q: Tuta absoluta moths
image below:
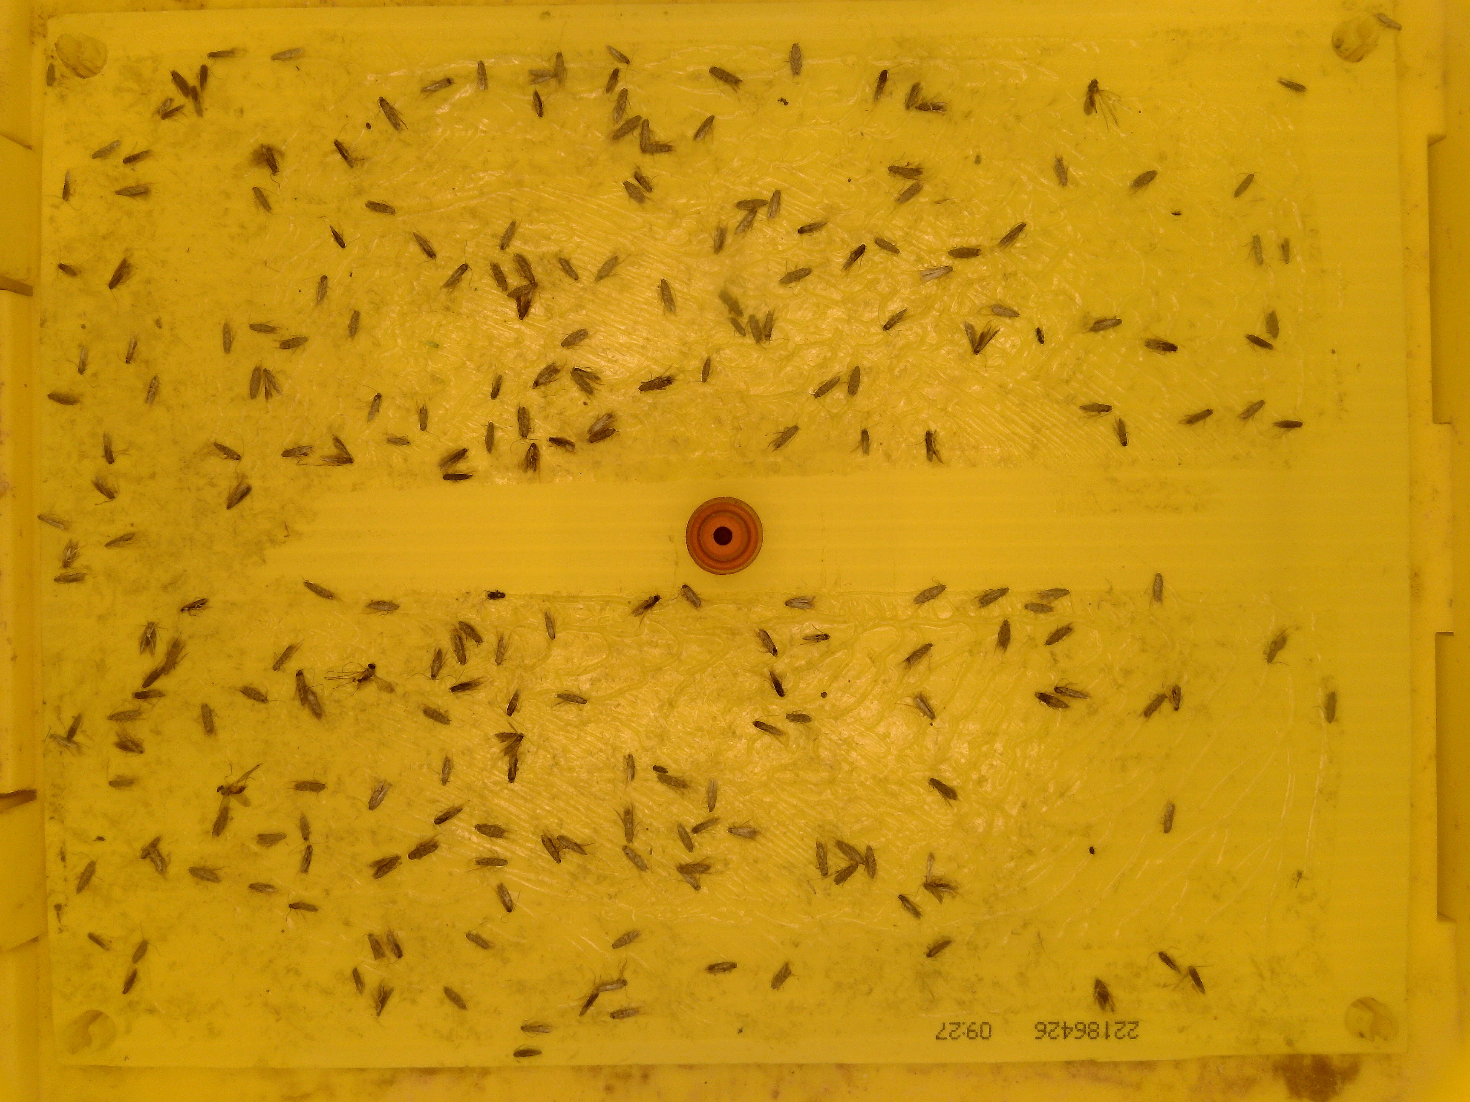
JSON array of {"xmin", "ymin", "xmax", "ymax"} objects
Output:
[
  {"xmin": 768, "ymin": 669, "xmax": 786, "ymax": 699},
  {"xmin": 252, "ymin": 142, "xmax": 282, "ymax": 174},
  {"xmin": 975, "ymin": 582, "xmax": 1010, "ymax": 607},
  {"xmin": 459, "ymin": 616, "xmax": 484, "ymax": 644},
  {"xmin": 560, "ymin": 324, "xmax": 590, "ymax": 347},
  {"xmin": 786, "ymin": 707, "xmax": 814, "ymax": 725},
  {"xmin": 903, "ymin": 79, "xmax": 924, "ymax": 109},
  {"xmin": 882, "ymin": 305, "xmax": 909, "ymax": 333},
  {"xmin": 995, "ymin": 618, "xmax": 1013, "ymax": 650},
  {"xmin": 1077, "ymin": 399, "xmax": 1113, "ymax": 417},
  {"xmin": 1272, "ymin": 416, "xmax": 1304, "ymax": 432},
  {"xmin": 1044, "ymin": 621, "xmax": 1074, "ymax": 649},
  {"xmin": 365, "ymin": 775, "xmax": 391, "ymax": 812},
  {"xmin": 602, "ymin": 64, "xmax": 620, "ymax": 93},
  {"xmin": 248, "ymin": 362, "xmax": 263, "ymax": 401},
  {"xmin": 278, "ymin": 440, "xmax": 315, "ymax": 461},
  {"xmin": 735, "ymin": 209, "xmax": 756, "ymax": 233},
  {"xmin": 56, "ymin": 259, "xmax": 80, "ymax": 279},
  {"xmin": 676, "ymin": 822, "xmax": 695, "ymax": 852},
  {"xmin": 264, "ymin": 365, "xmax": 280, "ymax": 401},
  {"xmin": 1023, "ymin": 598, "xmax": 1053, "ymax": 618},
  {"xmin": 249, "ymin": 316, "xmax": 278, "ymax": 335},
  {"xmin": 508, "ymin": 753, "xmax": 519, "ymax": 785},
  {"xmin": 248, "ymin": 878, "xmax": 279, "ymax": 896},
  {"xmin": 490, "ymin": 375, "xmax": 503, "ymax": 405},
  {"xmin": 111, "ymin": 733, "xmax": 146, "ymax": 754},
  {"xmin": 768, "ymin": 184, "xmax": 784, "ymax": 219},
  {"xmin": 124, "ymin": 328, "xmax": 139, "ymax": 363},
  {"xmin": 705, "ymin": 957, "xmax": 738, "ymax": 978},
  {"xmin": 700, "ymin": 354, "xmax": 713, "ymax": 385},
  {"xmin": 630, "ymin": 592, "xmax": 661, "ymax": 618},
  {"xmin": 410, "ymin": 231, "xmax": 438, "ymax": 262},
  {"xmin": 813, "ymin": 840, "xmax": 828, "ymax": 879},
  {"xmin": 802, "ymin": 629, "xmax": 831, "ymax": 647},
  {"xmin": 293, "ymin": 667, "xmax": 325, "ymax": 719},
  {"xmin": 754, "ymin": 626, "xmax": 779, "ymax": 656},
  {"xmin": 542, "ymin": 611, "xmax": 557, "ymax": 640},
  {"xmin": 420, "ymin": 703, "xmax": 451, "ymax": 726},
  {"xmin": 74, "ymin": 855, "xmax": 98, "ymax": 894},
  {"xmin": 513, "ymin": 1045, "xmax": 542, "ymax": 1060},
  {"xmin": 532, "ymin": 362, "xmax": 560, "ymax": 390},
  {"xmin": 416, "ymin": 402, "xmax": 430, "ymax": 435},
  {"xmin": 1001, "ymin": 217, "xmax": 1028, "ymax": 247},
  {"xmin": 844, "ymin": 244, "xmax": 866, "ymax": 271},
  {"xmin": 224, "ymin": 474, "xmax": 250, "ymax": 510},
  {"xmin": 572, "ymin": 370, "xmax": 595, "ymax": 398},
  {"xmin": 636, "ymin": 372, "xmax": 677, "ymax": 395},
  {"xmin": 299, "ymin": 842, "xmax": 314, "ymax": 877},
  {"xmin": 418, "ymin": 73, "xmax": 455, "ymax": 97},
  {"xmin": 619, "ymin": 846, "xmax": 650, "ymax": 873},
  {"xmin": 779, "ymin": 264, "xmax": 813, "ymax": 287},
  {"xmin": 552, "ymin": 51, "xmax": 568, "ymax": 87},
  {"xmin": 1035, "ymin": 689, "xmax": 1070, "ymax": 714},
  {"xmin": 493, "ymin": 633, "xmax": 510, "ymax": 666},
  {"xmin": 498, "ymin": 218, "xmax": 517, "ymax": 251},
  {"xmin": 1182, "ymin": 404, "xmax": 1215, "ymax": 427},
  {"xmin": 380, "ymin": 94, "xmax": 405, "ymax": 134},
  {"xmin": 443, "ymin": 259, "xmax": 469, "ymax": 291},
  {"xmin": 108, "ymin": 257, "xmax": 133, "ymax": 292},
  {"xmin": 1142, "ymin": 689, "xmax": 1166, "ymax": 719},
  {"xmin": 178, "ymin": 595, "xmax": 209, "ymax": 618},
  {"xmin": 692, "ymin": 113, "xmax": 719, "ymax": 142},
  {"xmin": 1278, "ymin": 75, "xmax": 1309, "ymax": 96},
  {"xmin": 350, "ymin": 965, "xmax": 365, "ymax": 995},
  {"xmin": 887, "ymin": 156, "xmax": 927, "ymax": 180},
  {"xmin": 428, "ymin": 644, "xmax": 444, "ymax": 678},
  {"xmin": 450, "ymin": 678, "xmax": 482, "ymax": 695},
  {"xmin": 709, "ymin": 64, "xmax": 746, "ymax": 91},
  {"xmin": 924, "ymin": 934, "xmax": 953, "ymax": 959},
  {"xmin": 46, "ymin": 386, "xmax": 81, "ymax": 408},
  {"xmin": 287, "ymin": 898, "xmax": 320, "ymax": 915},
  {"xmin": 145, "ymin": 370, "xmax": 162, "ymax": 403},
  {"xmin": 896, "ymin": 182, "xmax": 924, "ymax": 205},
  {"xmin": 532, "ymin": 88, "xmax": 546, "ymax": 118},
  {"xmin": 293, "ymin": 775, "xmax": 327, "ymax": 794},
  {"xmin": 1095, "ymin": 975, "xmax": 1119, "ymax": 1019},
  {"xmin": 555, "ymin": 255, "xmax": 580, "ymax": 282},
  {"xmin": 364, "ymin": 197, "xmax": 397, "ymax": 218},
  {"xmin": 515, "ymin": 293, "xmax": 531, "ymax": 321},
  {"xmin": 606, "ymin": 40, "xmax": 633, "ymax": 63},
  {"xmin": 795, "ymin": 215, "xmax": 826, "ymax": 235},
  {"xmin": 1149, "ymin": 571, "xmax": 1166, "ymax": 605},
  {"xmin": 610, "ymin": 925, "xmax": 642, "ymax": 953},
  {"xmin": 437, "ymin": 441, "xmax": 469, "ymax": 469},
  {"xmin": 1239, "ymin": 396, "xmax": 1266, "ymax": 424},
  {"xmin": 384, "ymin": 432, "xmax": 412, "ymax": 451},
  {"xmin": 364, "ymin": 594, "xmax": 400, "ymax": 617},
  {"xmin": 1264, "ymin": 628, "xmax": 1290, "ymax": 664},
  {"xmin": 497, "ymin": 882, "xmax": 515, "ymax": 917},
  {"xmin": 386, "ymin": 928, "xmax": 404, "ymax": 960},
  {"xmin": 106, "ymin": 705, "xmax": 143, "ymax": 725},
  {"xmin": 1143, "ymin": 334, "xmax": 1179, "ymax": 355},
  {"xmin": 1162, "ymin": 799, "xmax": 1176, "ymax": 833},
  {"xmin": 130, "ymin": 937, "xmax": 150, "ymax": 963},
  {"xmin": 121, "ymin": 968, "xmax": 137, "ymax": 997},
  {"xmin": 88, "ymin": 132, "xmax": 121, "ymax": 161},
  {"xmin": 873, "ymin": 65, "xmax": 889, "ymax": 103},
  {"xmin": 438, "ymin": 751, "xmax": 454, "ymax": 789},
  {"xmin": 787, "ymin": 41, "xmax": 805, "ymax": 79},
  {"xmin": 113, "ymin": 178, "xmax": 154, "ymax": 201},
  {"xmin": 220, "ymin": 319, "xmax": 235, "ymax": 354},
  {"xmin": 594, "ymin": 251, "xmax": 622, "ymax": 282},
  {"xmin": 655, "ymin": 770, "xmax": 696, "ymax": 795},
  {"xmin": 770, "ymin": 960, "xmax": 794, "ymax": 994},
  {"xmin": 1088, "ymin": 313, "xmax": 1123, "ymax": 334},
  {"xmin": 407, "ymin": 838, "xmax": 441, "ymax": 863},
  {"xmin": 612, "ymin": 113, "xmax": 643, "ymax": 141},
  {"xmin": 516, "ymin": 401, "xmax": 531, "ymax": 438},
  {"xmin": 897, "ymin": 890, "xmax": 921, "ymax": 921},
  {"xmin": 577, "ymin": 989, "xmax": 600, "ymax": 1019},
  {"xmin": 726, "ymin": 820, "xmax": 764, "ymax": 843},
  {"xmin": 905, "ymin": 641, "xmax": 935, "ymax": 669},
  {"xmin": 912, "ymin": 579, "xmax": 948, "ymax": 608},
  {"xmin": 171, "ymin": 68, "xmax": 196, "ymax": 102},
  {"xmin": 1128, "ymin": 166, "xmax": 1159, "ymax": 194},
  {"xmin": 505, "ymin": 688, "xmax": 522, "ymax": 718},
  {"xmin": 255, "ymin": 827, "xmax": 288, "ymax": 849},
  {"xmin": 547, "ymin": 434, "xmax": 577, "ymax": 453},
  {"xmin": 272, "ymin": 44, "xmax": 304, "ymax": 67},
  {"xmin": 485, "ymin": 588, "xmax": 508, "ymax": 605},
  {"xmin": 1246, "ymin": 332, "xmax": 1275, "ymax": 352},
  {"xmin": 124, "ymin": 148, "xmax": 152, "ymax": 168},
  {"xmin": 347, "ymin": 305, "xmax": 361, "ymax": 339},
  {"xmin": 1158, "ymin": 949, "xmax": 1181, "ymax": 976},
  {"xmin": 752, "ymin": 717, "xmax": 786, "ymax": 741},
  {"xmin": 872, "ymin": 233, "xmax": 900, "ymax": 255},
  {"xmin": 475, "ymin": 820, "xmax": 507, "ymax": 840},
  {"xmin": 587, "ymin": 425, "xmax": 618, "ymax": 445},
  {"xmin": 767, "ymin": 422, "xmax": 800, "ymax": 453},
  {"xmin": 713, "ymin": 222, "xmax": 727, "ymax": 253},
  {"xmin": 679, "ymin": 582, "xmax": 703, "ymax": 610},
  {"xmin": 328, "ymin": 224, "xmax": 347, "ymax": 250},
  {"xmin": 371, "ymin": 854, "xmax": 402, "ymax": 881},
  {"xmin": 103, "ymin": 530, "xmax": 135, "ymax": 551},
  {"xmin": 442, "ymin": 983, "xmax": 470, "ymax": 1015},
  {"xmin": 1188, "ymin": 963, "xmax": 1209, "ymax": 998},
  {"xmin": 621, "ymin": 799, "xmax": 636, "ymax": 843},
  {"xmin": 483, "ymin": 416, "xmax": 497, "ymax": 453},
  {"xmin": 372, "ymin": 983, "xmax": 392, "ymax": 1016},
  {"xmin": 252, "ymin": 185, "xmax": 273, "ymax": 215},
  {"xmin": 519, "ymin": 1016, "xmax": 554, "ymax": 1035},
  {"xmin": 366, "ymin": 390, "xmax": 382, "ymax": 424},
  {"xmin": 197, "ymin": 699, "xmax": 216, "ymax": 737},
  {"xmin": 1323, "ymin": 688, "xmax": 1338, "ymax": 726},
  {"xmin": 474, "ymin": 57, "xmax": 490, "ymax": 90},
  {"xmin": 488, "ymin": 261, "xmax": 508, "ymax": 291},
  {"xmin": 182, "ymin": 861, "xmax": 223, "ymax": 886},
  {"xmin": 234, "ymin": 681, "xmax": 270, "ymax": 705},
  {"xmin": 916, "ymin": 690, "xmax": 938, "ymax": 722},
  {"xmin": 138, "ymin": 618, "xmax": 158, "ymax": 655},
  {"xmin": 1114, "ymin": 416, "xmax": 1129, "ymax": 447},
  {"xmin": 946, "ymin": 239, "xmax": 983, "ymax": 260},
  {"xmin": 812, "ymin": 371, "xmax": 841, "ymax": 397},
  {"xmin": 1052, "ymin": 156, "xmax": 1070, "ymax": 186},
  {"xmin": 864, "ymin": 843, "xmax": 879, "ymax": 880},
  {"xmin": 782, "ymin": 590, "xmax": 816, "ymax": 615},
  {"xmin": 465, "ymin": 926, "xmax": 493, "ymax": 952},
  {"xmin": 848, "ymin": 362, "xmax": 862, "ymax": 396},
  {"xmin": 621, "ymin": 178, "xmax": 645, "ymax": 206},
  {"xmin": 207, "ymin": 436, "xmax": 241, "ymax": 463},
  {"xmin": 928, "ymin": 774, "xmax": 959, "ymax": 805},
  {"xmin": 432, "ymin": 802, "xmax": 463, "ymax": 826},
  {"xmin": 279, "ymin": 330, "xmax": 310, "ymax": 350},
  {"xmin": 523, "ymin": 439, "xmax": 541, "ymax": 471},
  {"xmin": 554, "ymin": 689, "xmax": 588, "ymax": 706},
  {"xmin": 1234, "ymin": 171, "xmax": 1256, "ymax": 199},
  {"xmin": 65, "ymin": 714, "xmax": 83, "ymax": 741}
]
